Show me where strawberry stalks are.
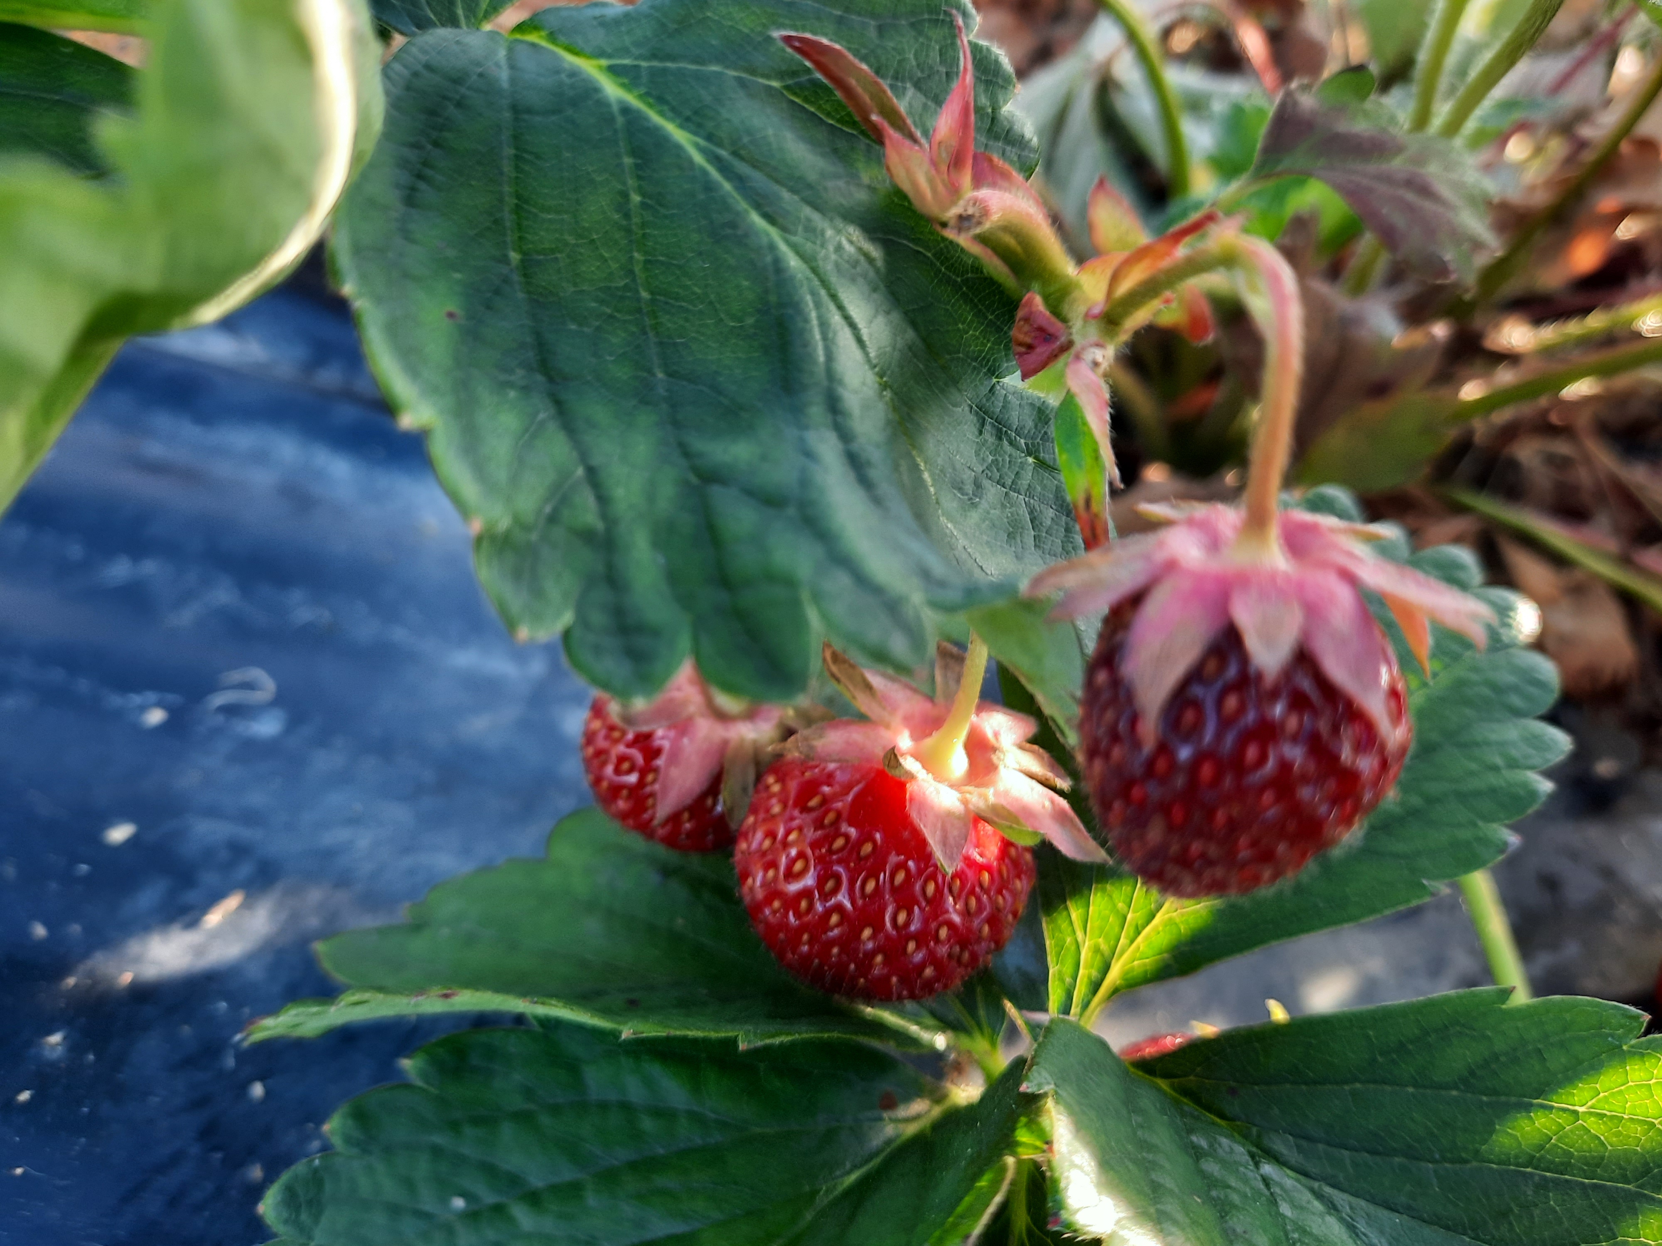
[1194,239,1298,635]
[918,623,996,794]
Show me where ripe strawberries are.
[1062,540,1430,888]
[563,655,791,830]
[727,709,1039,983]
